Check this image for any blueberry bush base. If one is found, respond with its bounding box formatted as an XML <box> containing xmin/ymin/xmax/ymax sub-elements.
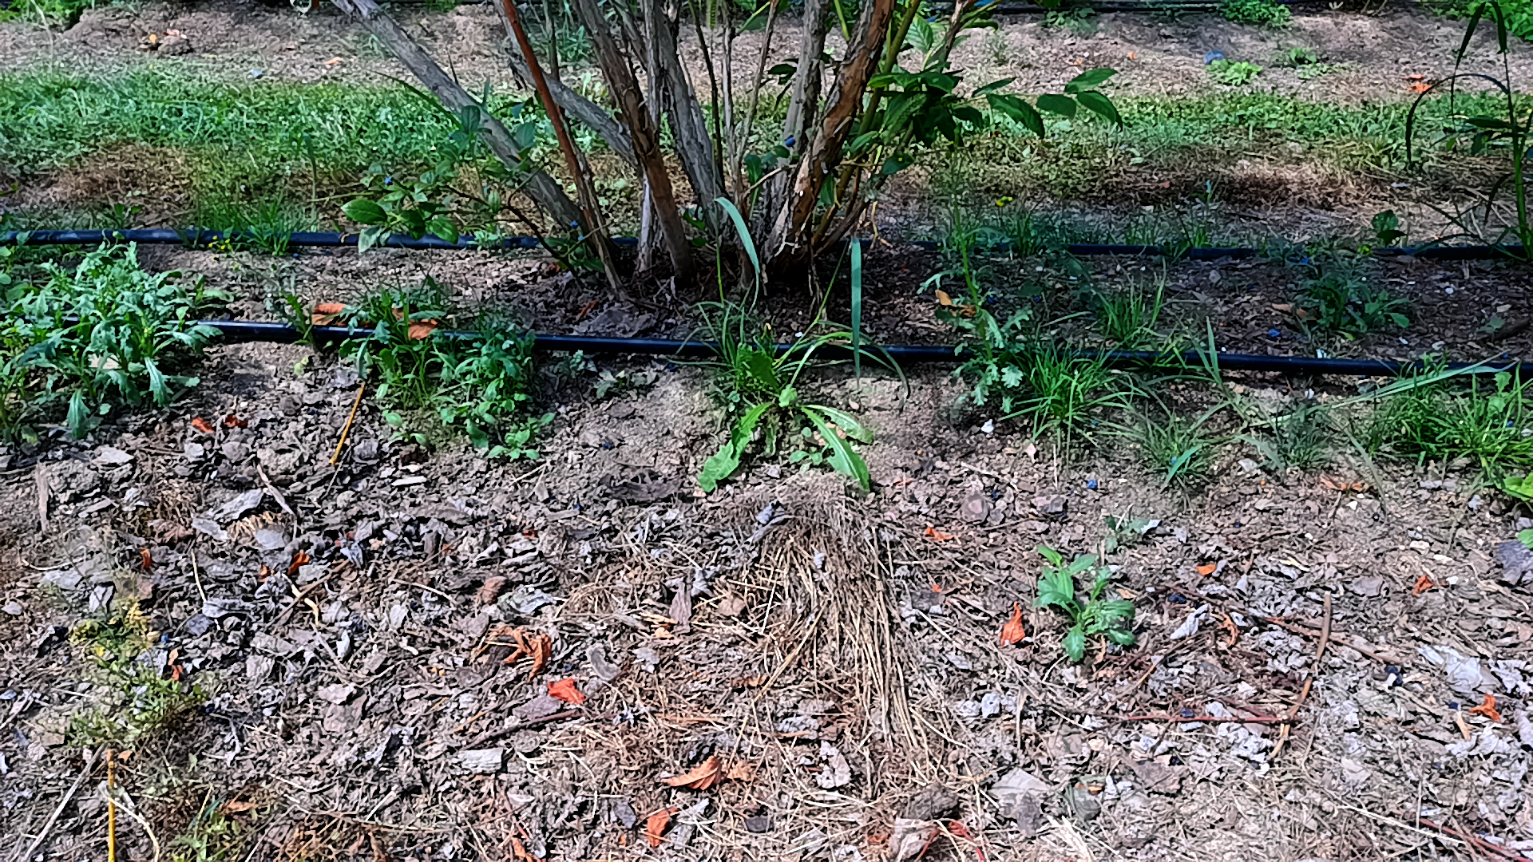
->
<box><xmin>503</xmin><ymin>100</ymin><xmax>907</xmax><ymax>393</ymax></box>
